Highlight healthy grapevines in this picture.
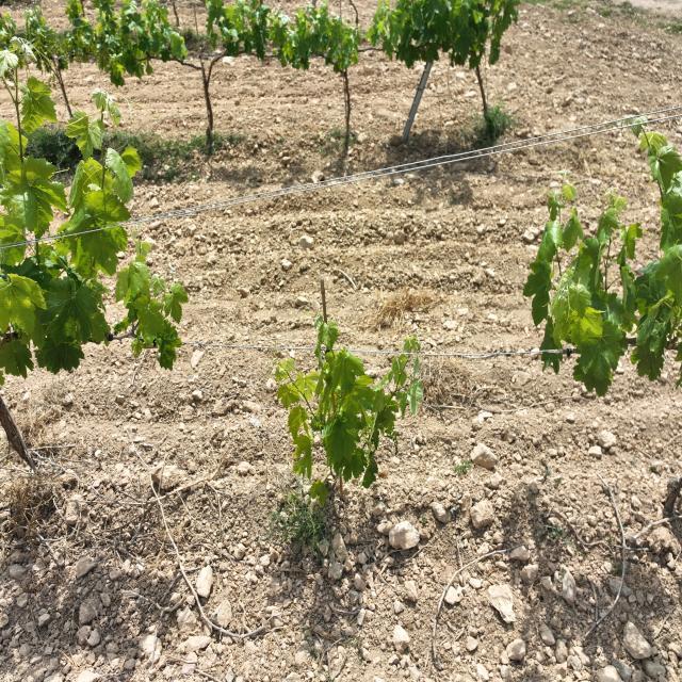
[514,111,682,489]
[0,115,186,499]
[262,295,433,539]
